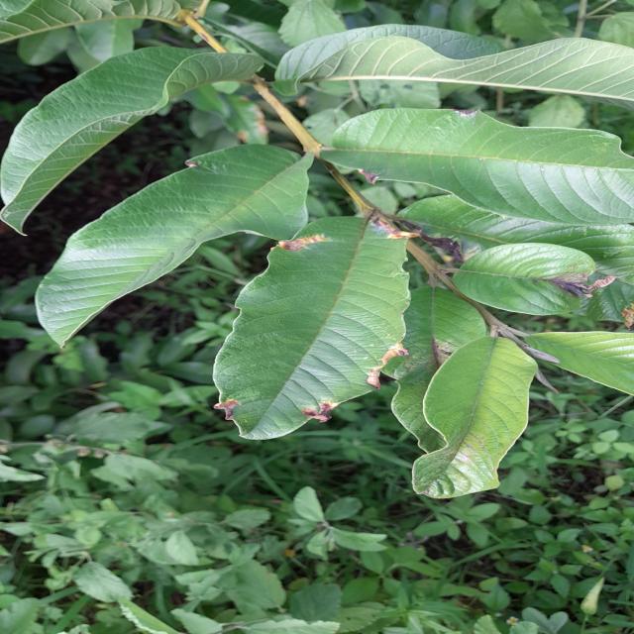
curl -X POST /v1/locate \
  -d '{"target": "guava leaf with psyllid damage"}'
[194,196,424,447]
